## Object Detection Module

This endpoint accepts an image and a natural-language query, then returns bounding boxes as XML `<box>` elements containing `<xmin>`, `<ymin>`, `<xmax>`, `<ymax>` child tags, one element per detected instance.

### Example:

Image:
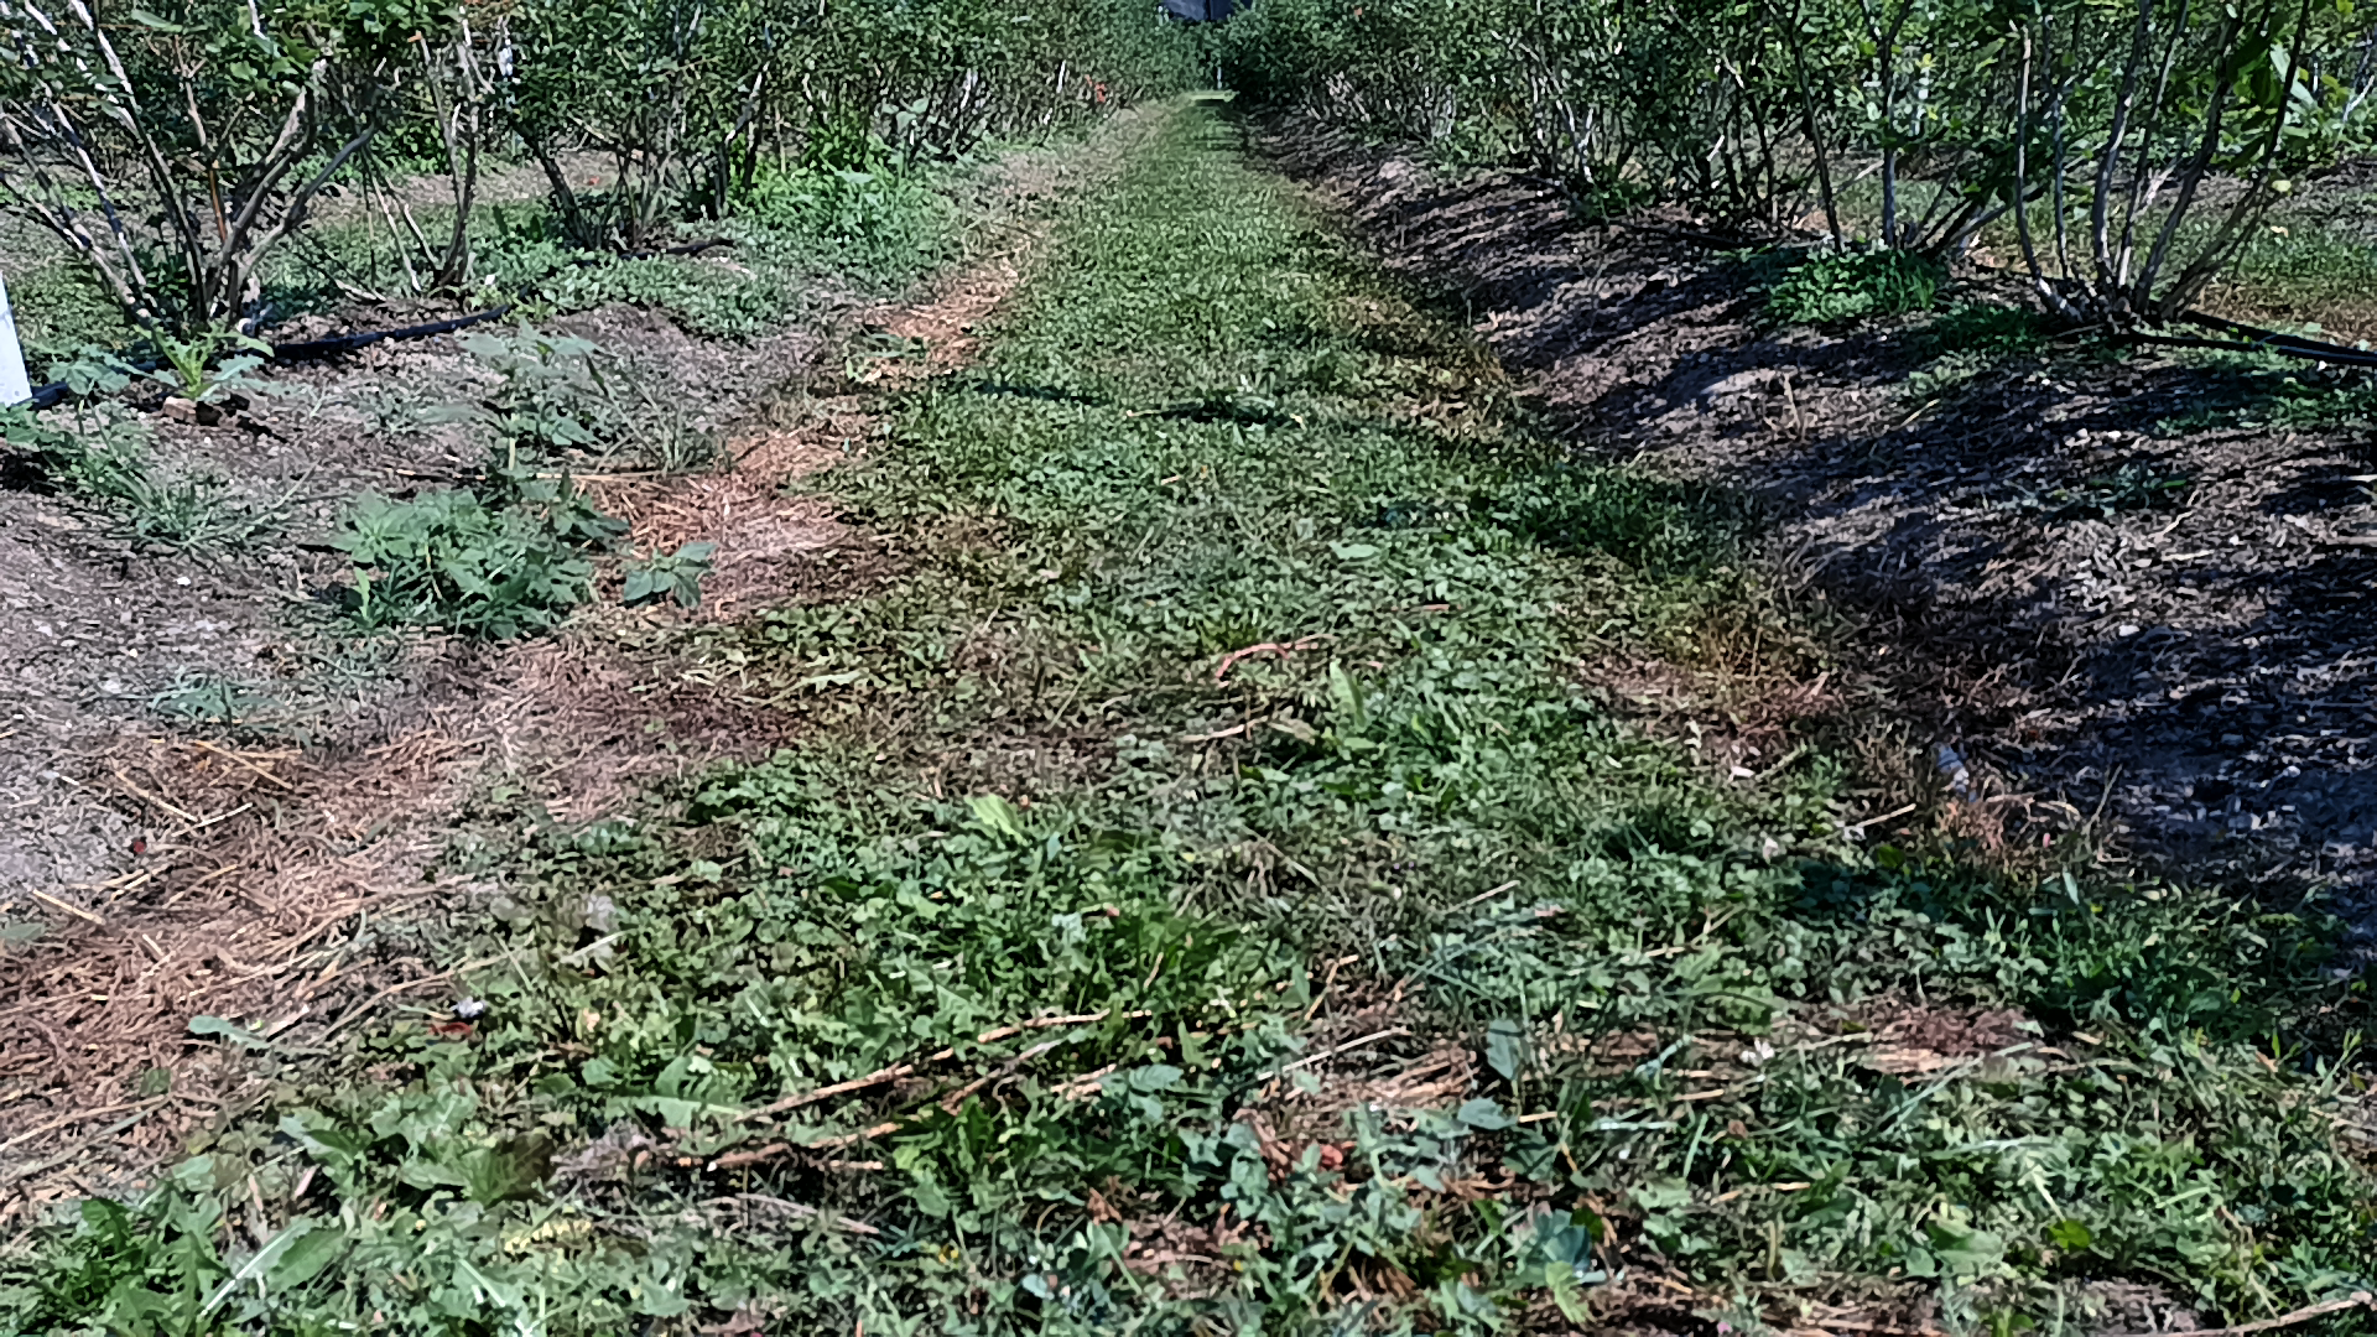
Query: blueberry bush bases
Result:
<box><xmin>61</xmin><ymin>207</ymin><xmax>311</xmax><ymax>394</ymax></box>
<box><xmin>1513</xmin><ymin>123</ymin><xmax>1656</xmax><ymax>223</ymax></box>
<box><xmin>683</xmin><ymin>122</ymin><xmax>773</xmax><ymax>235</ymax></box>
<box><xmin>1801</xmin><ymin>171</ymin><xmax>1978</xmax><ymax>316</ymax></box>
<box><xmin>547</xmin><ymin>155</ymin><xmax>738</xmax><ymax>297</ymax></box>
<box><xmin>1696</xmin><ymin>132</ymin><xmax>1788</xmax><ymax>240</ymax></box>
<box><xmin>1998</xmin><ymin>209</ymin><xmax>2262</xmax><ymax>385</ymax></box>
<box><xmin>306</xmin><ymin>205</ymin><xmax>509</xmax><ymax>328</ymax></box>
